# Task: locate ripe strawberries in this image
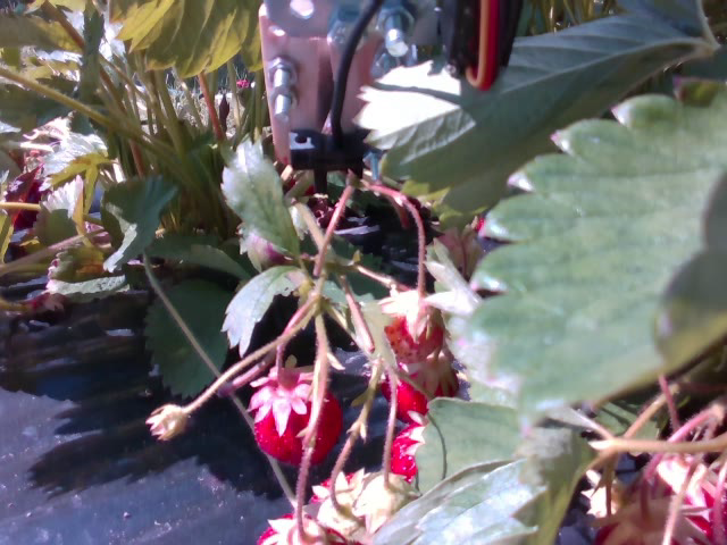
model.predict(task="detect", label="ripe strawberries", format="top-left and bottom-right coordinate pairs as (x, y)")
top-left (386, 354), bottom-right (459, 413)
top-left (247, 381), bottom-right (343, 458)
top-left (386, 310), bottom-right (446, 356)
top-left (393, 417), bottom-right (440, 477)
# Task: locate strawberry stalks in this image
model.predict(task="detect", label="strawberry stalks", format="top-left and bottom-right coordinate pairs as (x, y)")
top-left (261, 305), bottom-right (316, 405)
top-left (406, 231), bottom-right (431, 332)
